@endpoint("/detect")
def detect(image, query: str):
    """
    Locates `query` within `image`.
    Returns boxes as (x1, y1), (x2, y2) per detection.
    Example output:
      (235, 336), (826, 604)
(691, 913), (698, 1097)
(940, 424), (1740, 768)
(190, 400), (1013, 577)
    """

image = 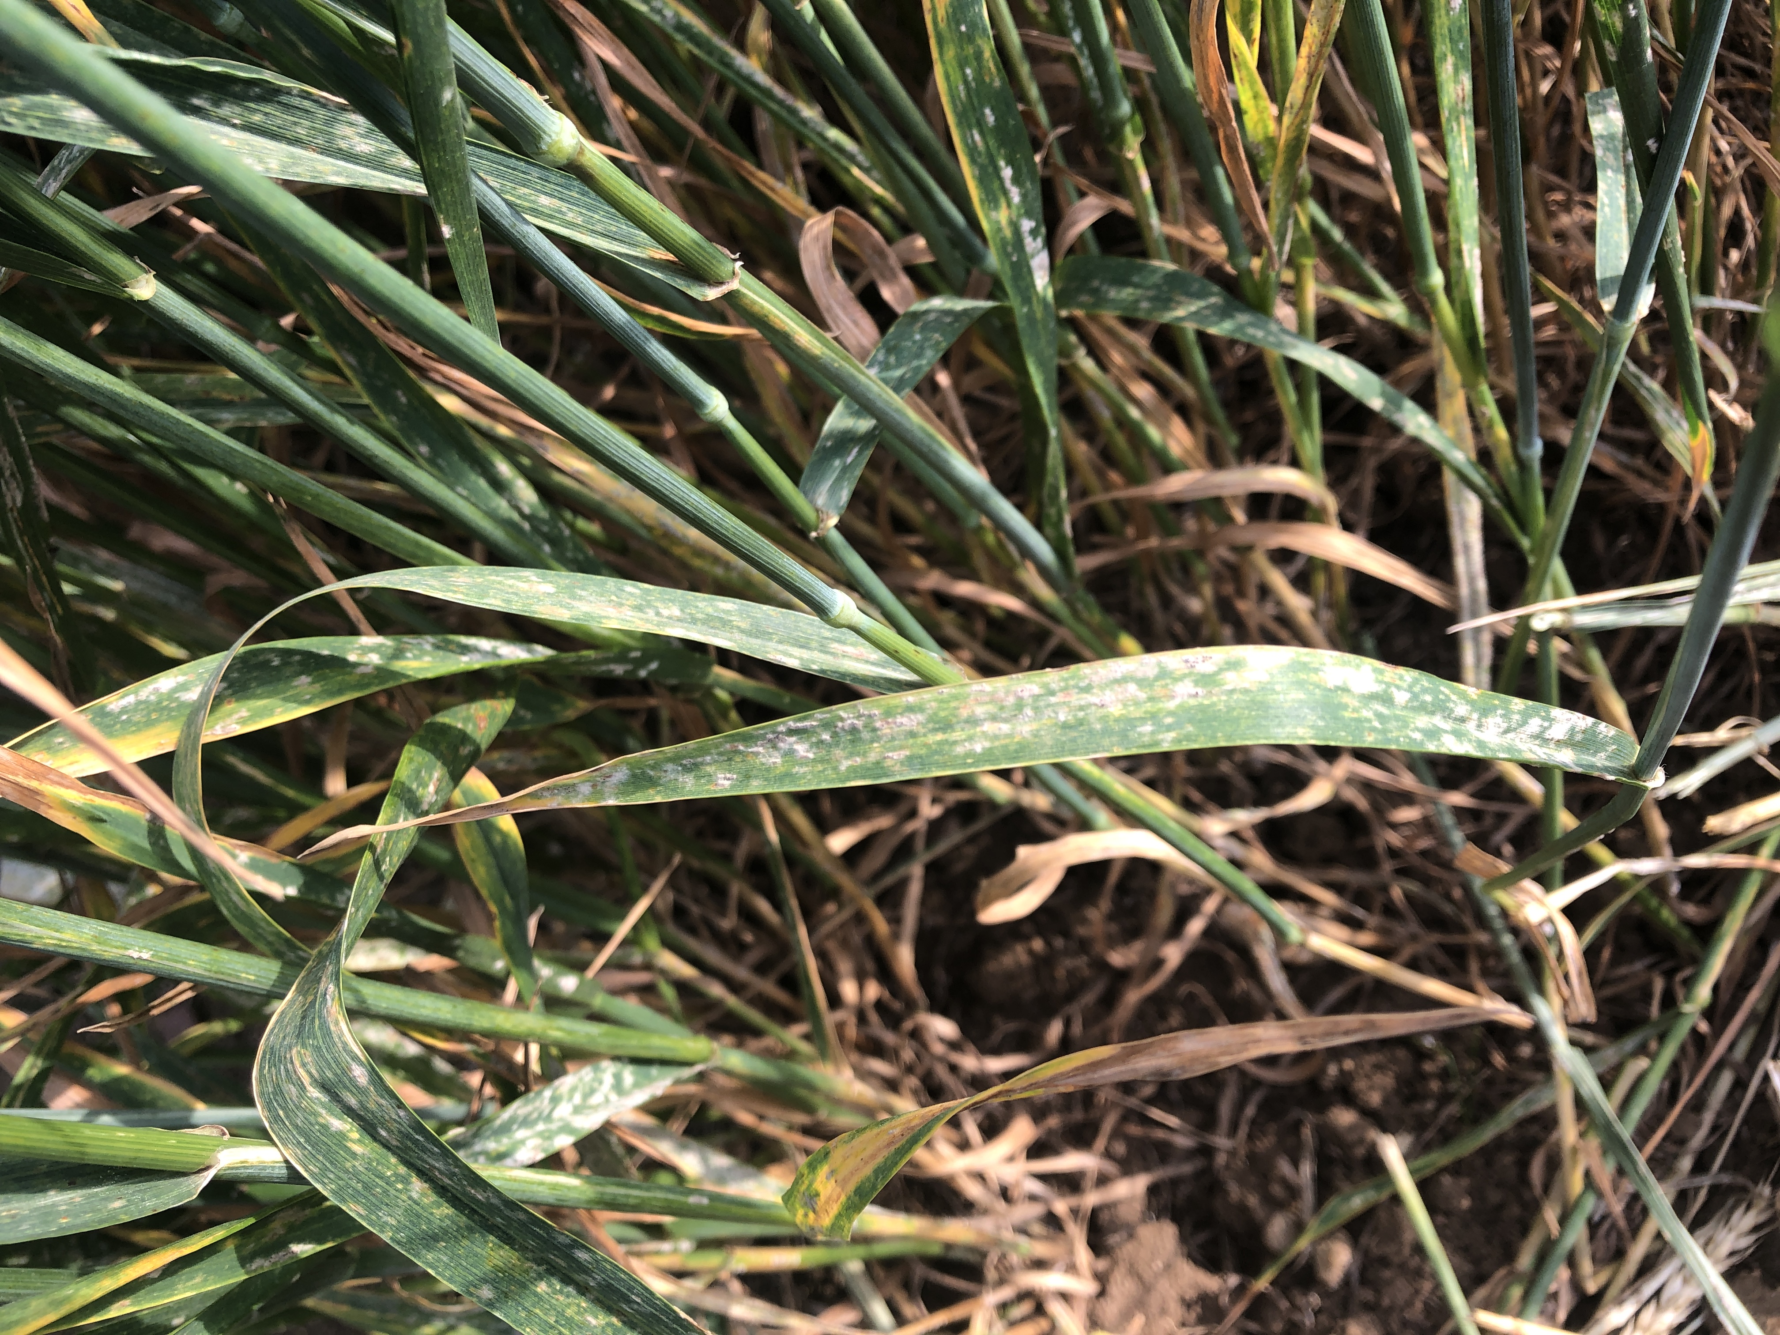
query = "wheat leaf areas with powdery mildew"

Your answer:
(384, 742), (479, 820)
(15, 82), (136, 153)
(170, 45), (423, 192)
(1095, 231), (1487, 477)
(244, 989), (683, 1316)
(916, 18), (1075, 369)
(460, 1016), (729, 1185)
(533, 653), (1607, 805)
(37, 582), (555, 783)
